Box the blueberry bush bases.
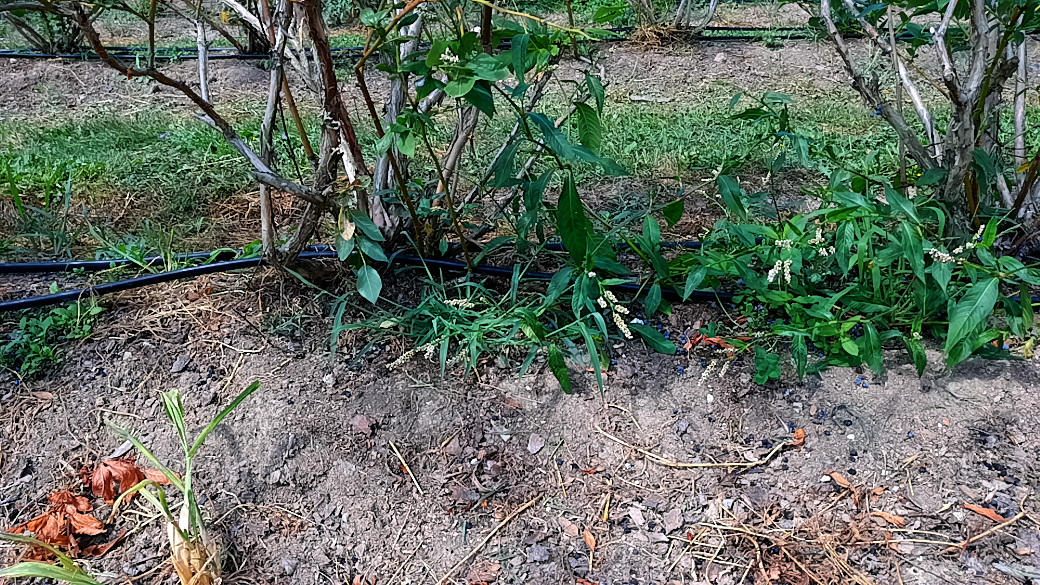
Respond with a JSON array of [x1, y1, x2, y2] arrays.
[[860, 88, 1040, 328], [213, 133, 557, 341], [23, 23, 90, 68], [620, 5, 720, 45]]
